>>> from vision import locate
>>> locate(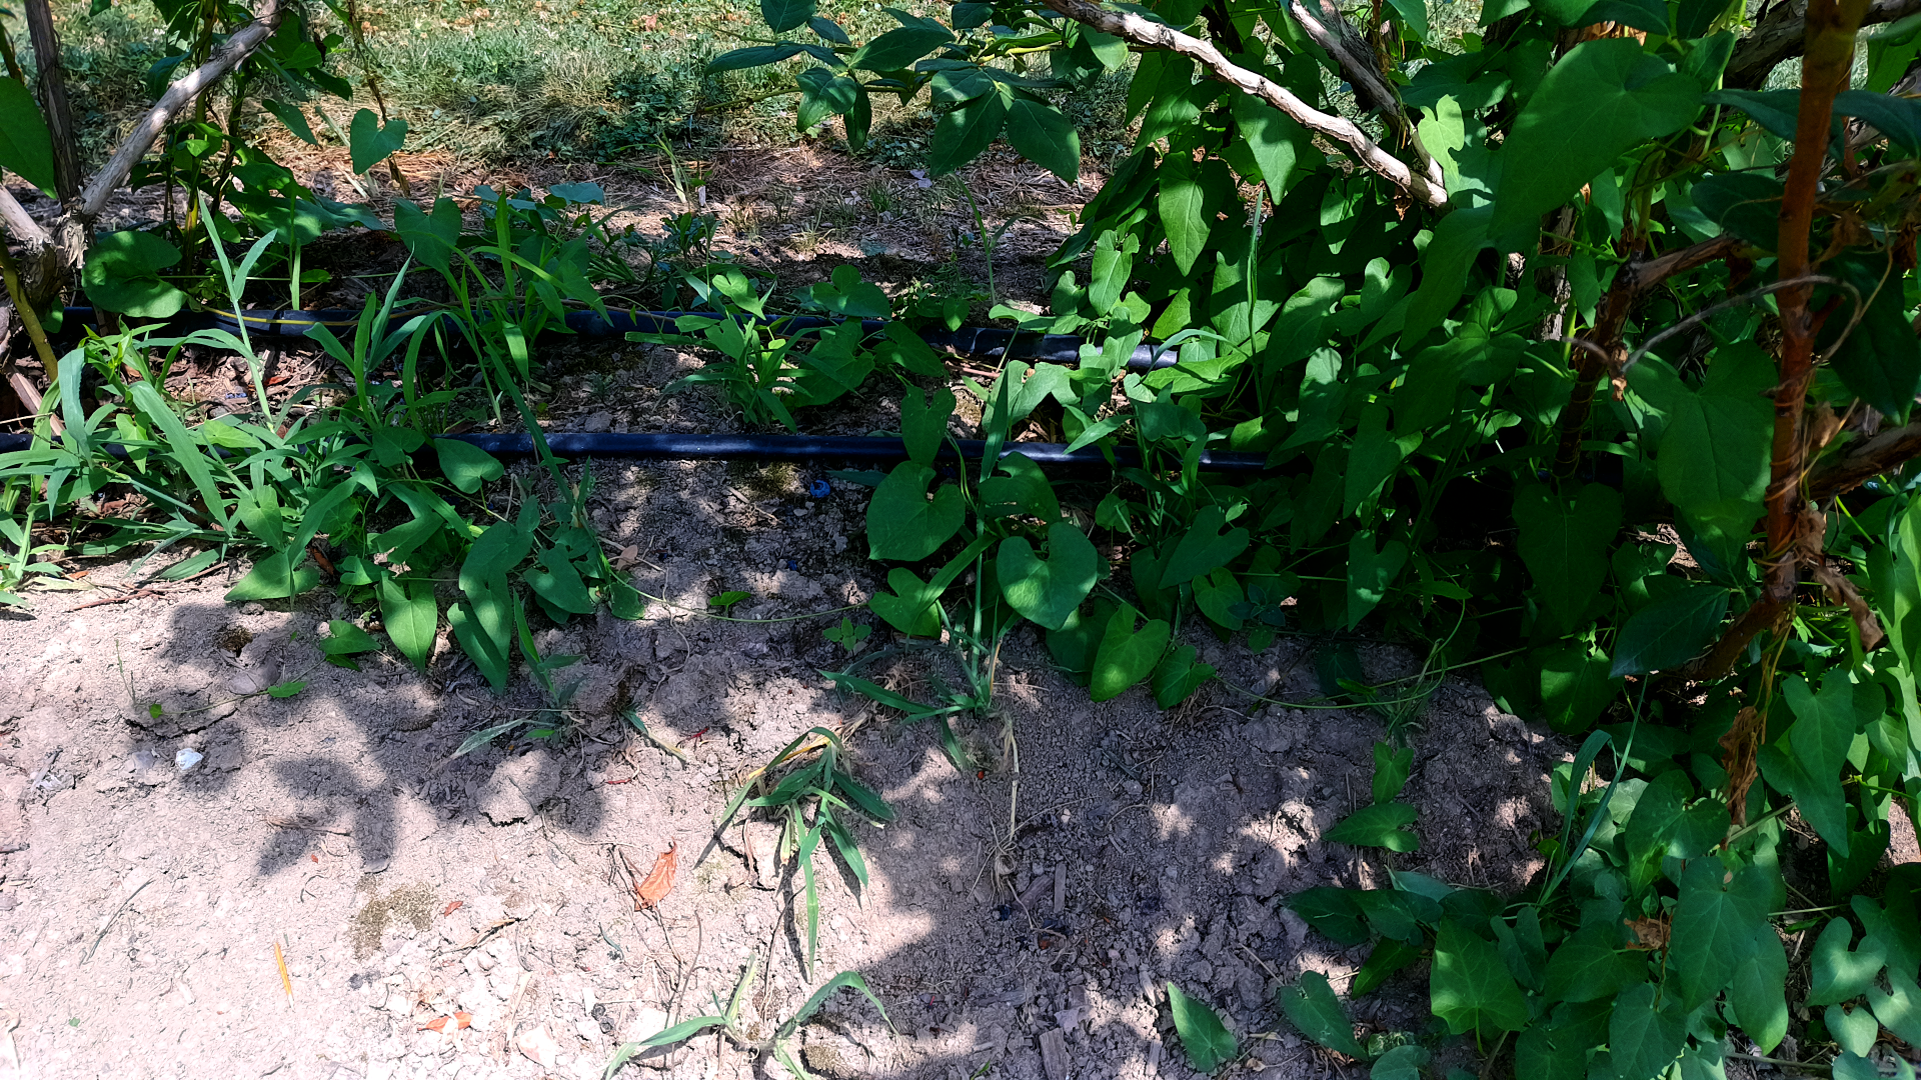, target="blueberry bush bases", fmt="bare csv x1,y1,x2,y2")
1235,65,1921,781
0,58,302,482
